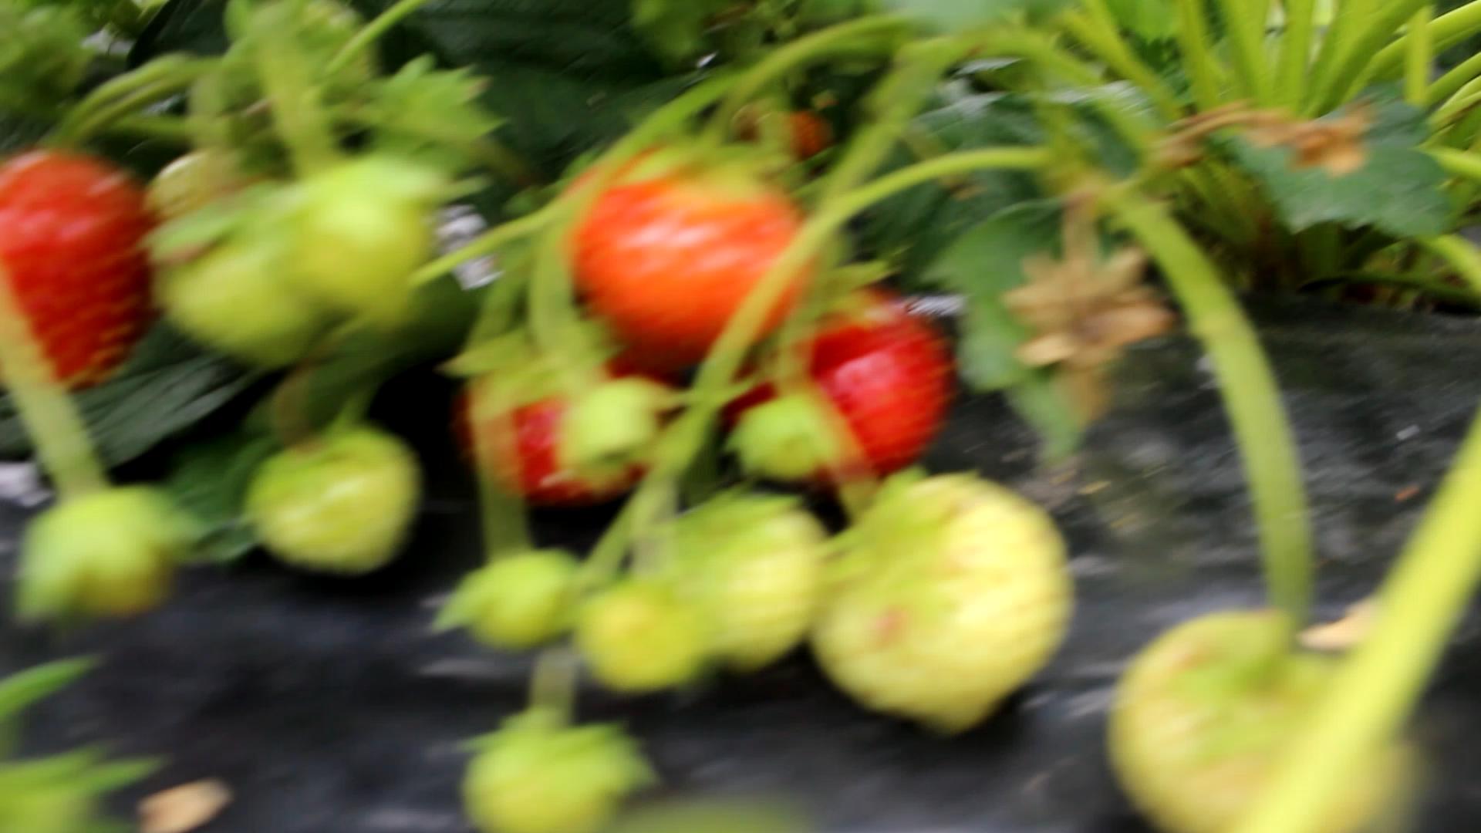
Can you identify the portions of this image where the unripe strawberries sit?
[584,574,688,704]
[1102,597,1387,833]
[244,431,420,580]
[655,497,816,679]
[447,545,581,651]
[460,717,642,829]
[23,495,197,625]
[811,484,1064,747]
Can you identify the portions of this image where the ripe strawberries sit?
[567,134,811,376]
[3,142,168,393]
[755,275,1002,452]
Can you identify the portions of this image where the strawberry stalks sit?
[666,5,931,155]
[321,380,371,457]
[473,470,537,572]
[1226,504,1333,697]
[517,615,584,760]
[43,38,206,189]
[815,431,869,540]
[31,405,91,507]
